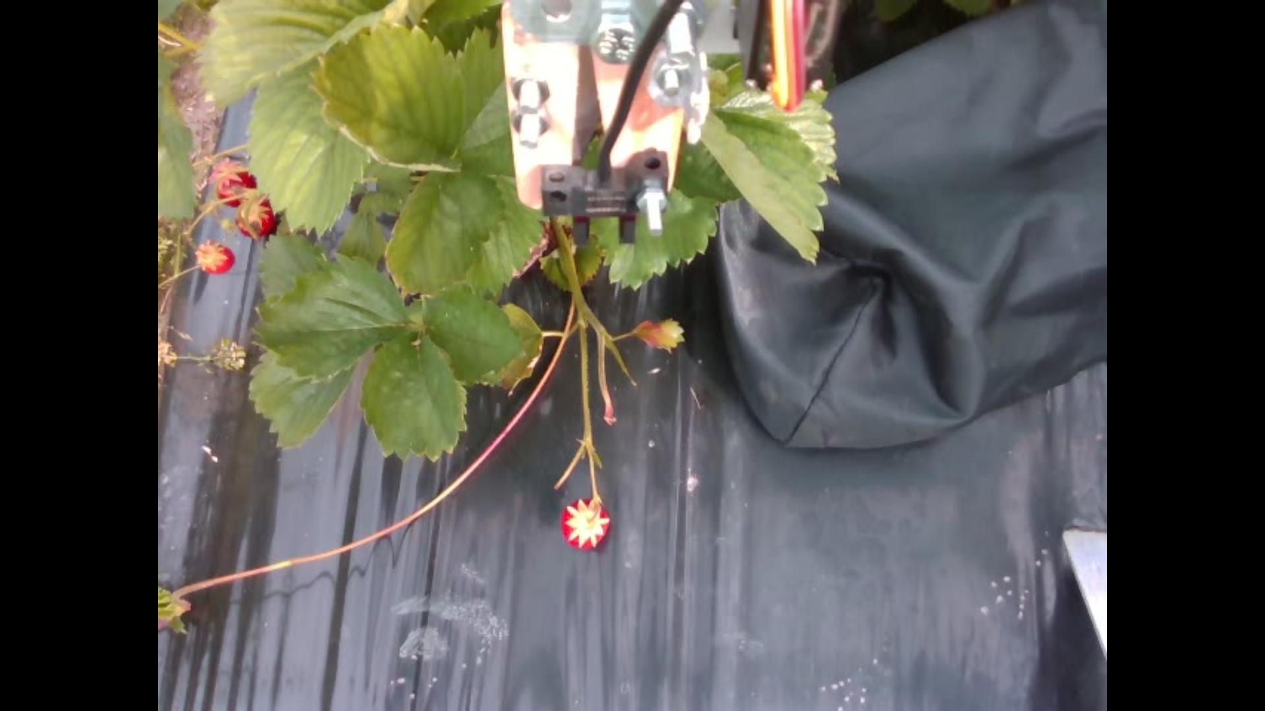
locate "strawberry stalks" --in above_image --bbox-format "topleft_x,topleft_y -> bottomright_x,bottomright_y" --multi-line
579,370 -> 603,518
160,263 -> 212,294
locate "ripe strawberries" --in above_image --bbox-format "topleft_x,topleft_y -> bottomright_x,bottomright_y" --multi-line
236,199 -> 291,240
558,491 -> 617,551
191,246 -> 238,275
211,160 -> 265,209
